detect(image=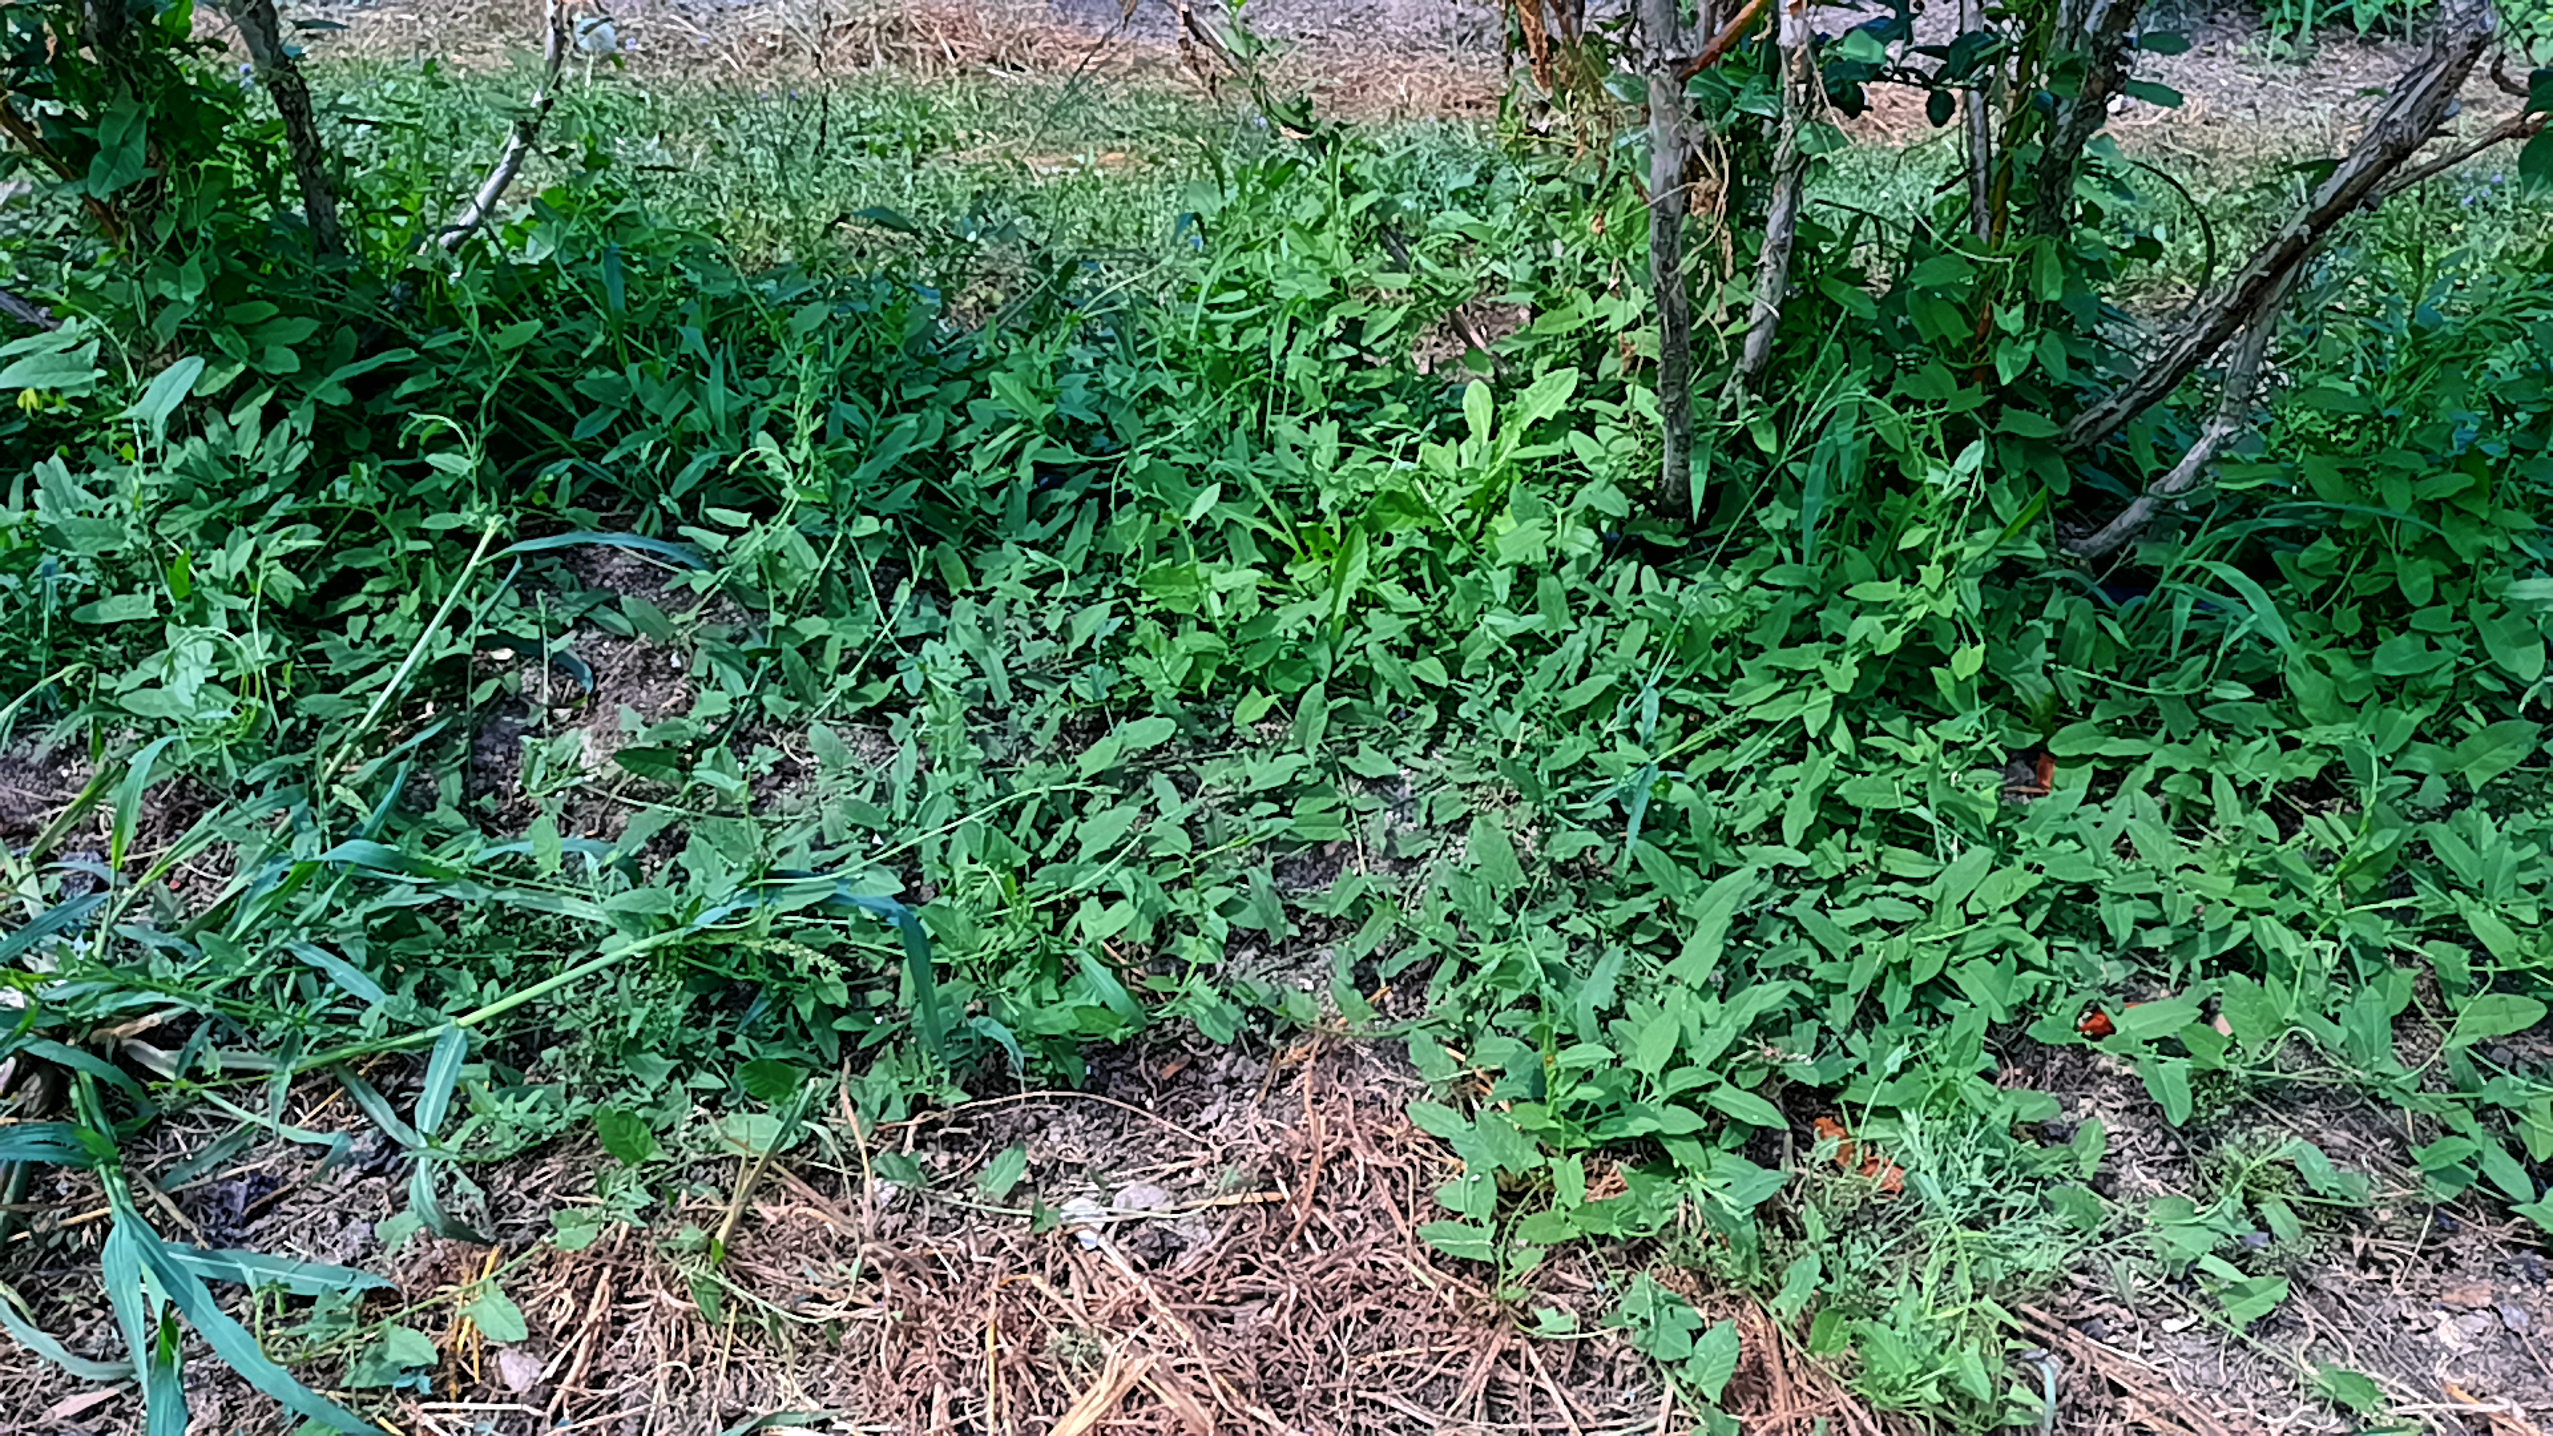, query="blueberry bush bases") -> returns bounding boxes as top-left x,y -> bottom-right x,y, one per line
1593,153 -> 2352,729
16,8 -> 605,584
